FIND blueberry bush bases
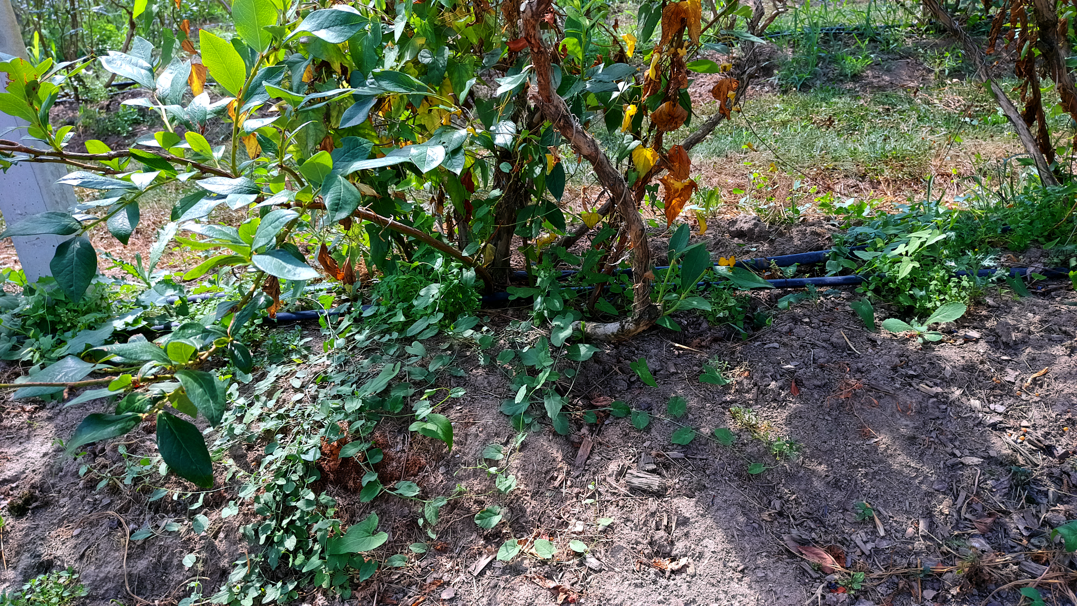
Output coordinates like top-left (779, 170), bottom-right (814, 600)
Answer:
top-left (987, 100), bottom-right (1077, 282)
top-left (288, 174), bottom-right (698, 415)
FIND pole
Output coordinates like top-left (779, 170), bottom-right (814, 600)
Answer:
top-left (0, 97), bottom-right (118, 327)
